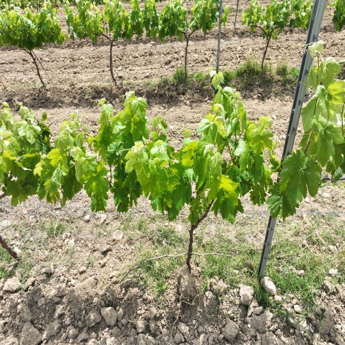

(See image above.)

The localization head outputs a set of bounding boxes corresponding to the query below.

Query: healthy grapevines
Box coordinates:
[54,62,324,287]
[0,98,57,268]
